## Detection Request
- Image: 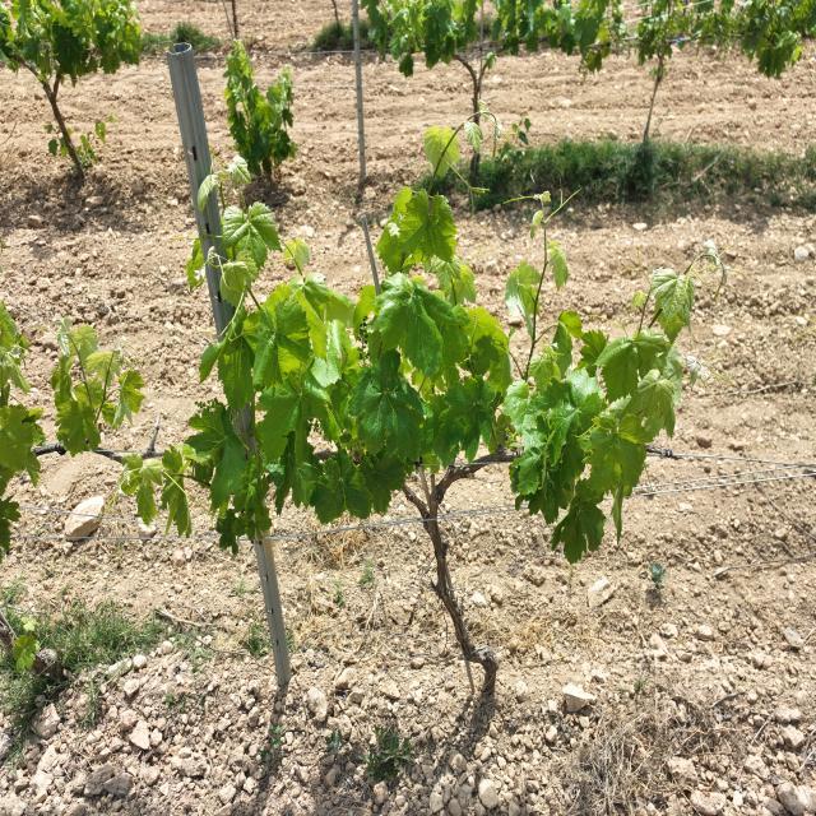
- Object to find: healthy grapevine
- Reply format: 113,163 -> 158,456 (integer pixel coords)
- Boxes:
0,162 -> 706,713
